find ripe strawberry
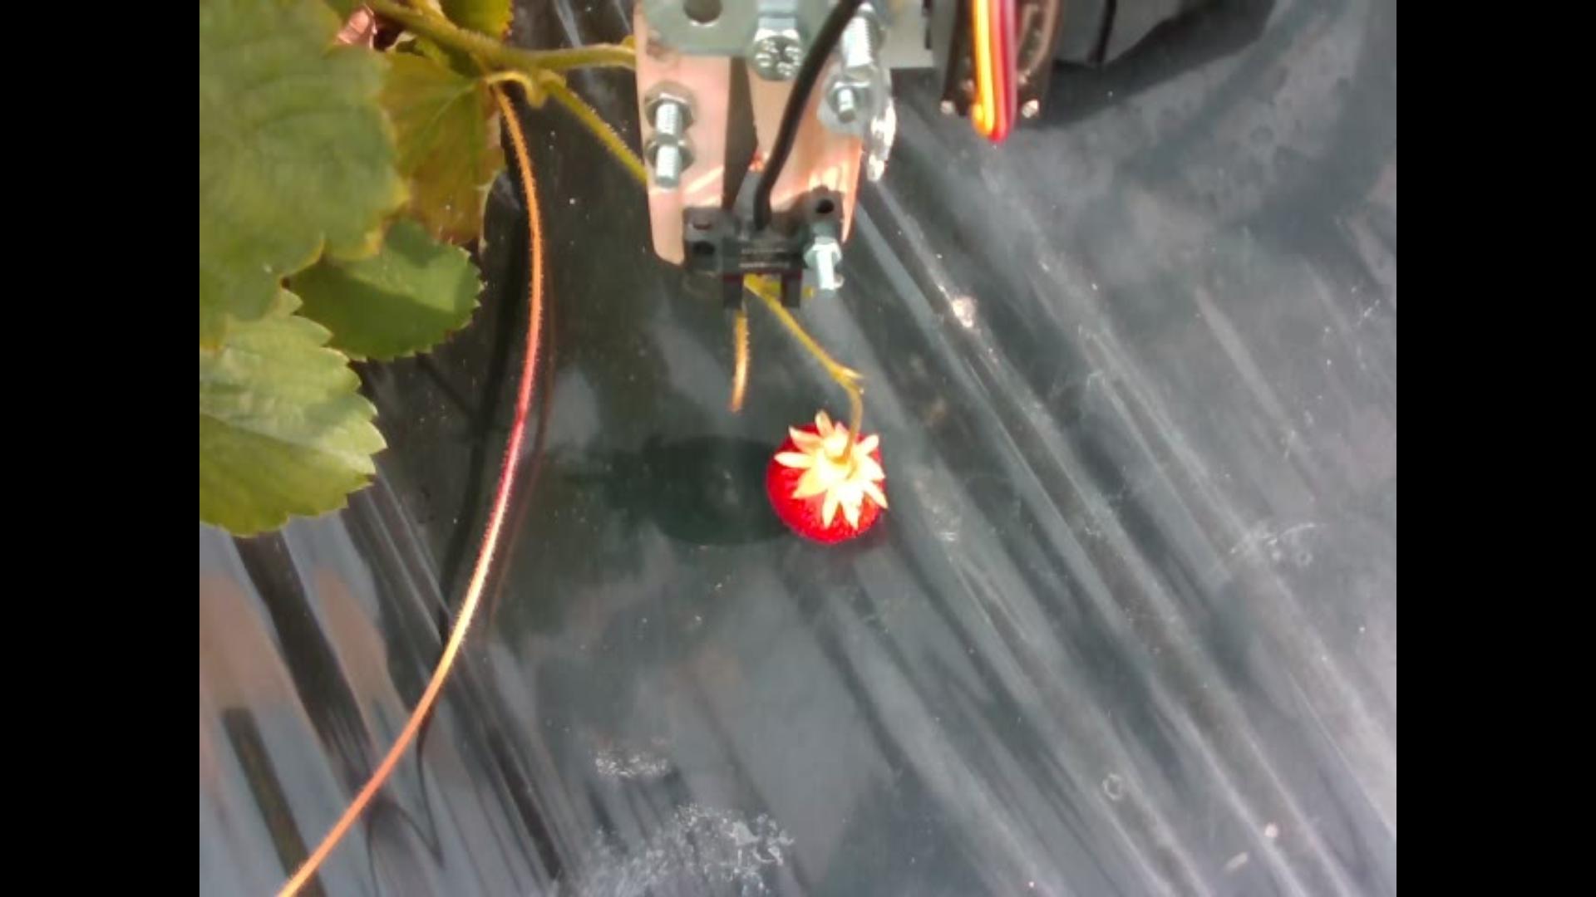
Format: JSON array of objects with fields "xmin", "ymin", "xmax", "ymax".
[{"xmin": 763, "ymin": 412, "xmax": 899, "ymax": 553}]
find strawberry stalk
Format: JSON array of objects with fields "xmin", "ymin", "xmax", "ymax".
[{"xmin": 798, "ymin": 360, "xmax": 878, "ymax": 468}]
